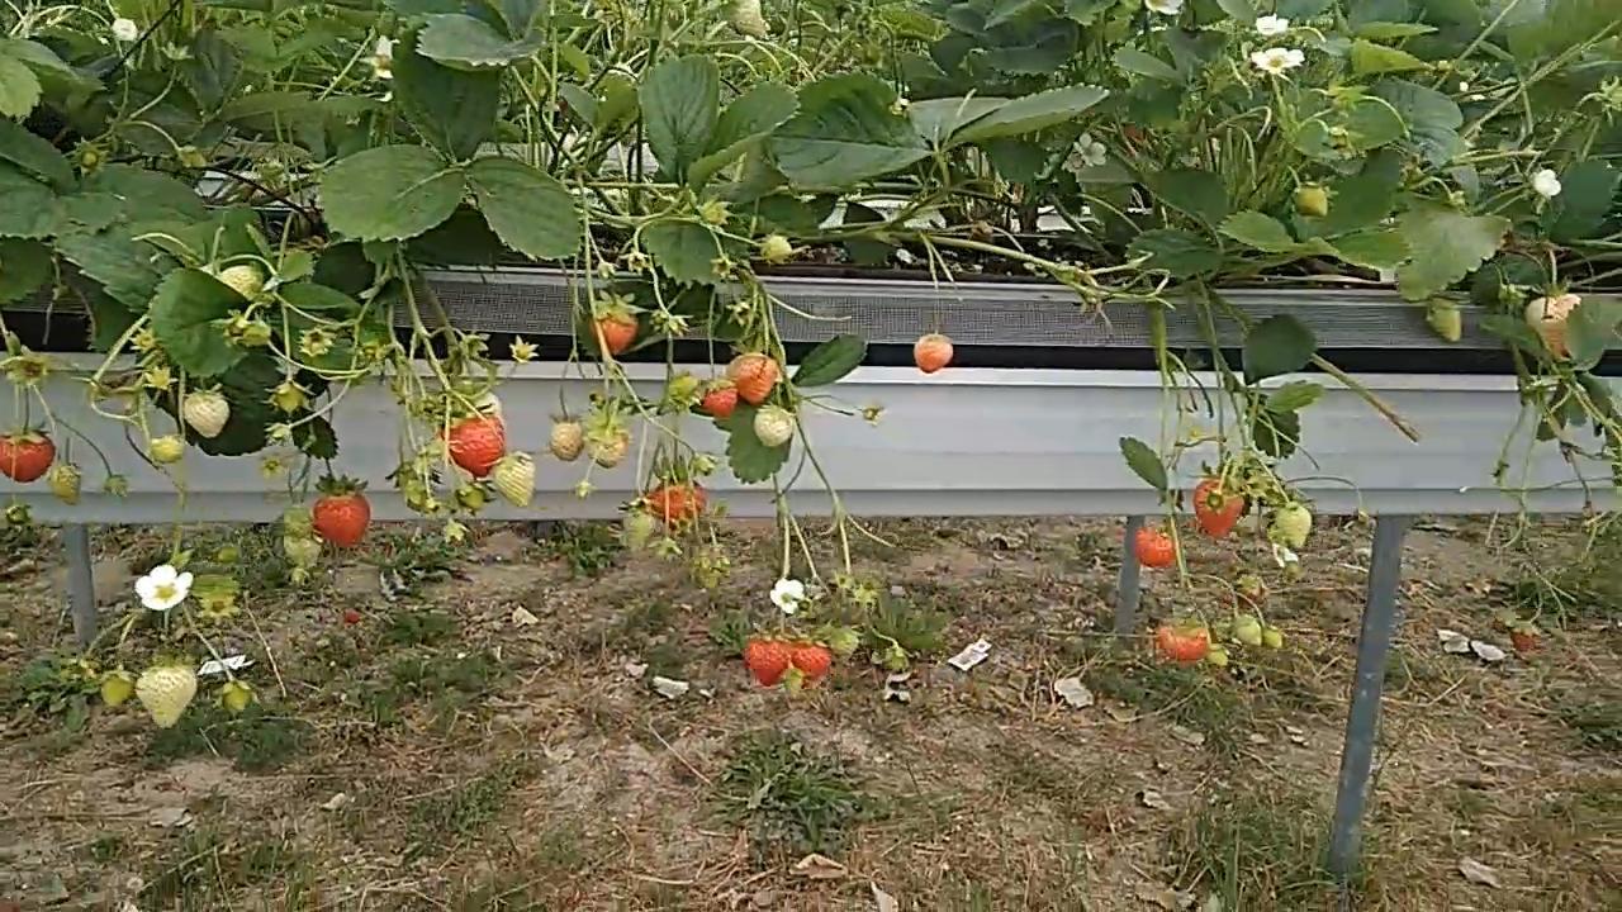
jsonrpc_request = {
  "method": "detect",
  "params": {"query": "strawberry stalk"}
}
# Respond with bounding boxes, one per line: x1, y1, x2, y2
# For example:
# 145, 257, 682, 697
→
17, 381, 37, 450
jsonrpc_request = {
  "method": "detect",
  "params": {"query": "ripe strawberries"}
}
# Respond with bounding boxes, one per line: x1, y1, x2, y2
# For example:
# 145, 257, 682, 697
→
0, 427, 56, 486
743, 635, 785, 693
793, 638, 827, 684
1153, 623, 1204, 664
1195, 478, 1242, 541
1136, 529, 1175, 573
440, 412, 504, 472
698, 381, 735, 425
314, 494, 376, 551
592, 302, 642, 353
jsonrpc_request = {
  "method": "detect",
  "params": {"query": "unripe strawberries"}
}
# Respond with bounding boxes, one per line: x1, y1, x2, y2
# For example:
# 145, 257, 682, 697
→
623, 509, 656, 552
137, 668, 195, 735
727, 350, 776, 407
1232, 612, 1268, 650
282, 529, 331, 582
186, 390, 238, 443
1425, 303, 1472, 343
145, 434, 188, 470
1511, 628, 1543, 659
765, 238, 796, 265
1528, 298, 1576, 337
1277, 506, 1315, 549
915, 336, 950, 377
545, 421, 582, 460
203, 262, 274, 306
45, 463, 87, 507
755, 409, 796, 457
588, 432, 626, 469
491, 455, 539, 512
1289, 184, 1335, 218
